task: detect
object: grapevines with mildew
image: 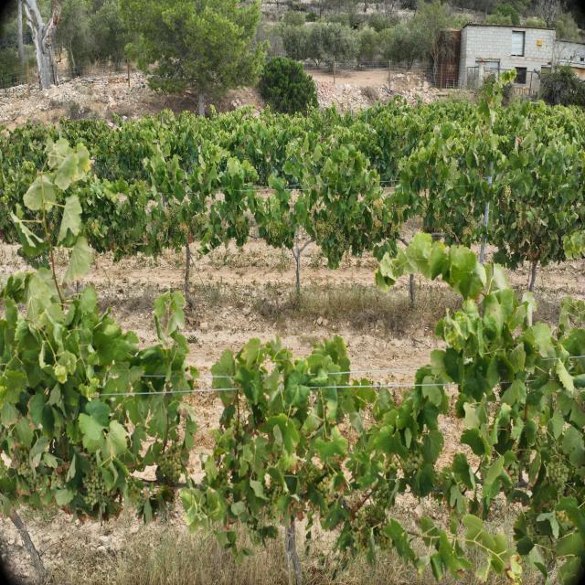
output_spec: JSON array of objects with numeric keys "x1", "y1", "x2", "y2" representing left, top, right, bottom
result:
[
  {"x1": 0, "y1": 285, "x2": 188, "y2": 585},
  {"x1": 183, "y1": 337, "x2": 419, "y2": 585},
  {"x1": 422, "y1": 314, "x2": 585, "y2": 585}
]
